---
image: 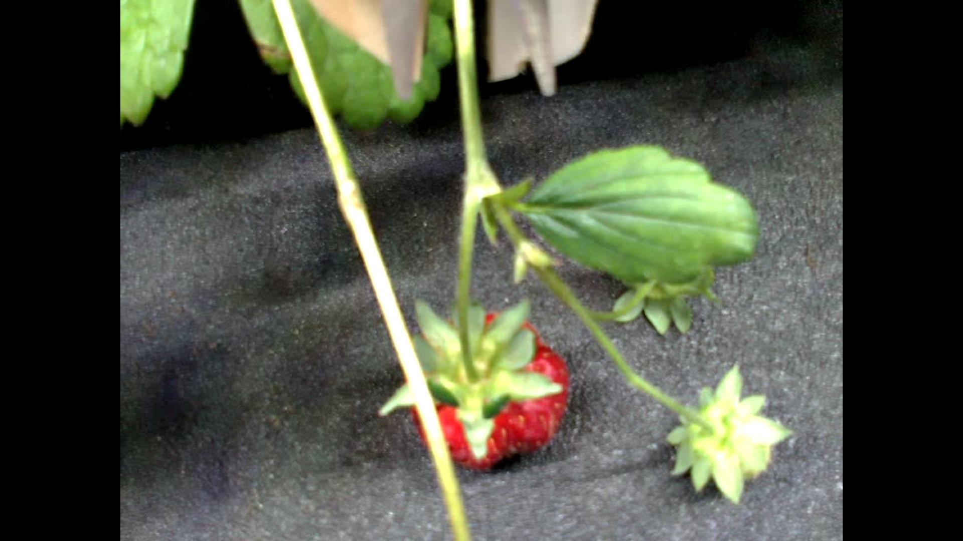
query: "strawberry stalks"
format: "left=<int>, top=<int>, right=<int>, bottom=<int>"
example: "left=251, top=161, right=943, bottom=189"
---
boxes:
left=421, top=214, right=534, bottom=401
left=623, top=363, right=722, bottom=432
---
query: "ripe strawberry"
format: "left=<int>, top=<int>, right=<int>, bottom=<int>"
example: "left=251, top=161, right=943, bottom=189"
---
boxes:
left=412, top=307, right=565, bottom=474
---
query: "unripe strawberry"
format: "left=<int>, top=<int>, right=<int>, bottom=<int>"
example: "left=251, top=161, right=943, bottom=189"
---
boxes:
left=494, top=385, right=539, bottom=401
